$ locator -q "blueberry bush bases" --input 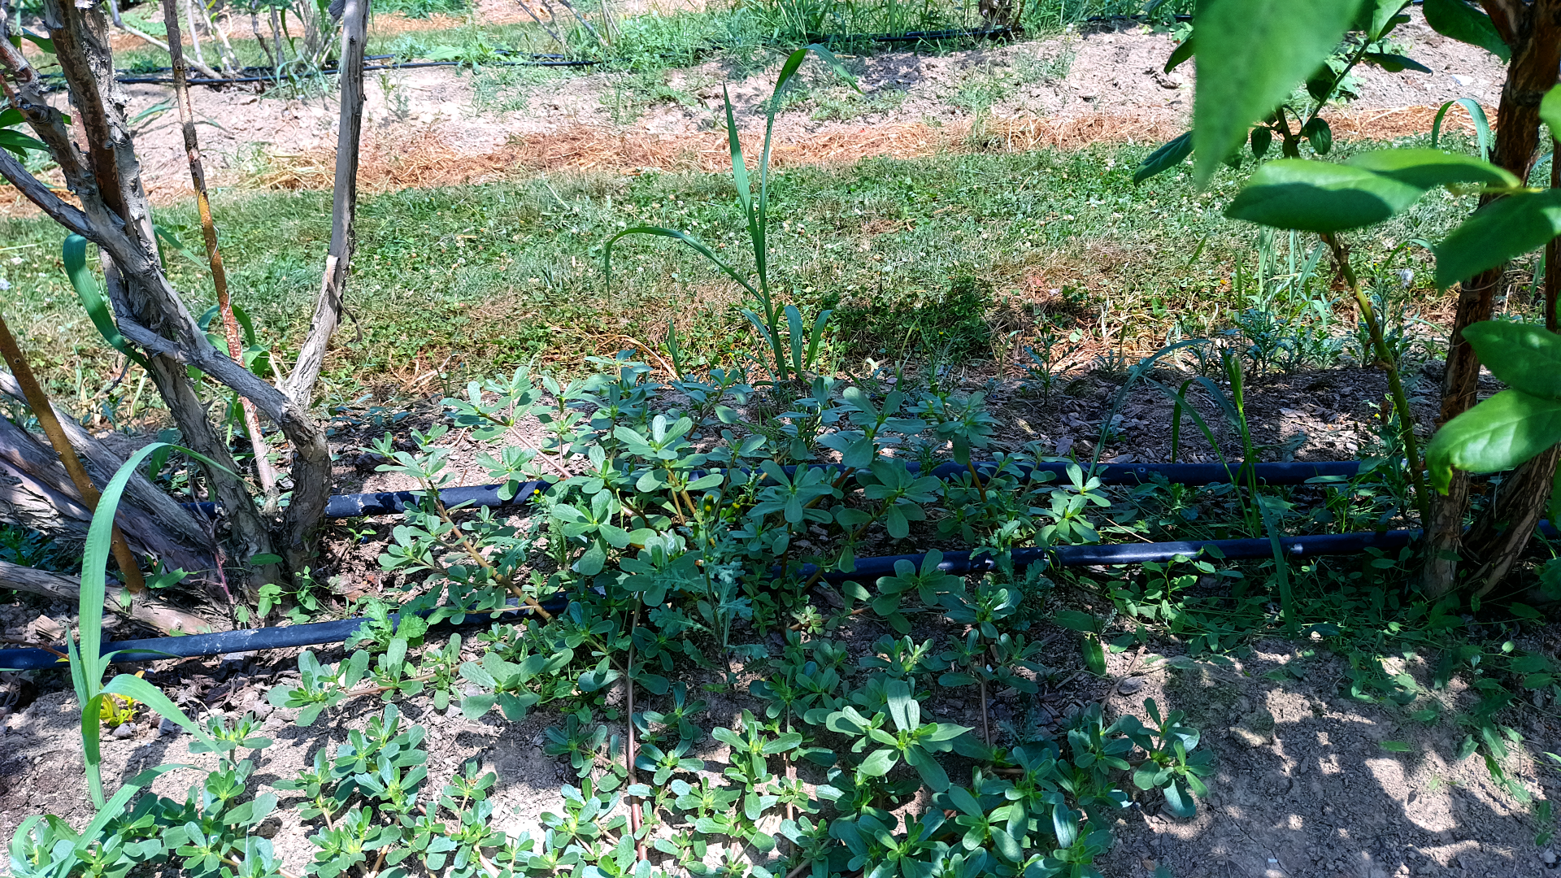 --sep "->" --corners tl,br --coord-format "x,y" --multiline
968,5 -> 1032,44
1346,398 -> 1561,667
7,285 -> 407,676
176,35 -> 349,100
530,20 -> 643,74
